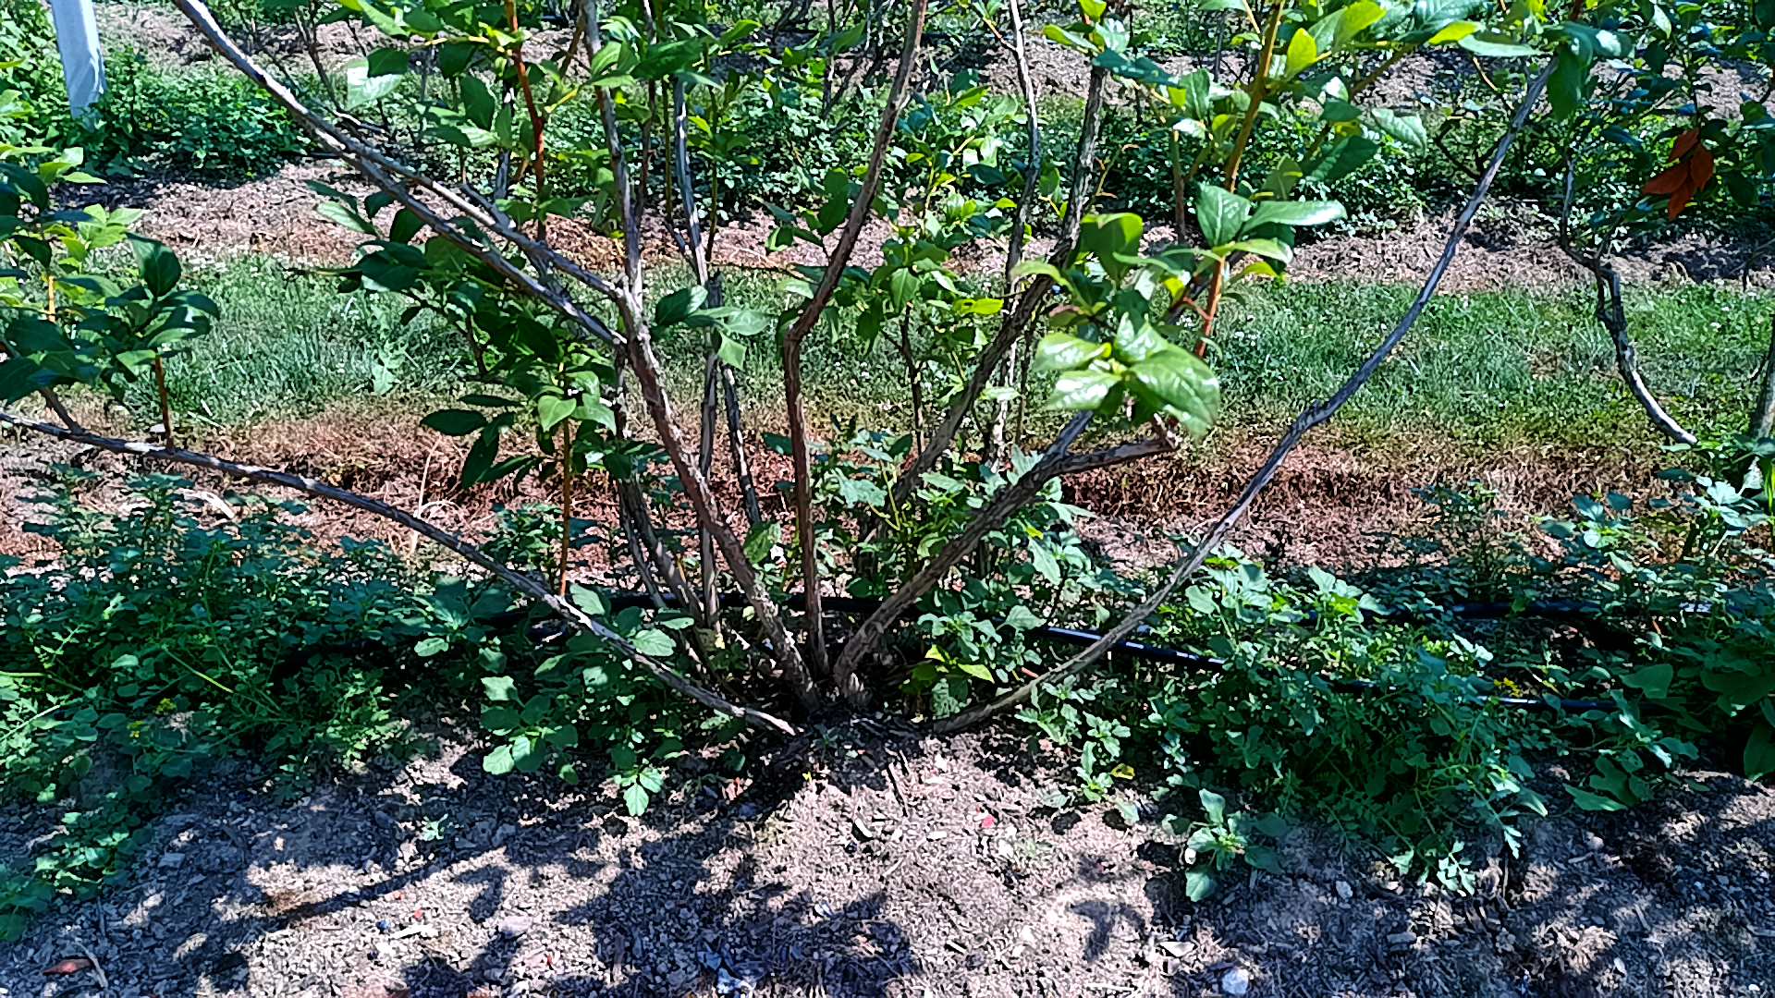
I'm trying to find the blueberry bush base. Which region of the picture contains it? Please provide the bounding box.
[549,422,1057,783]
